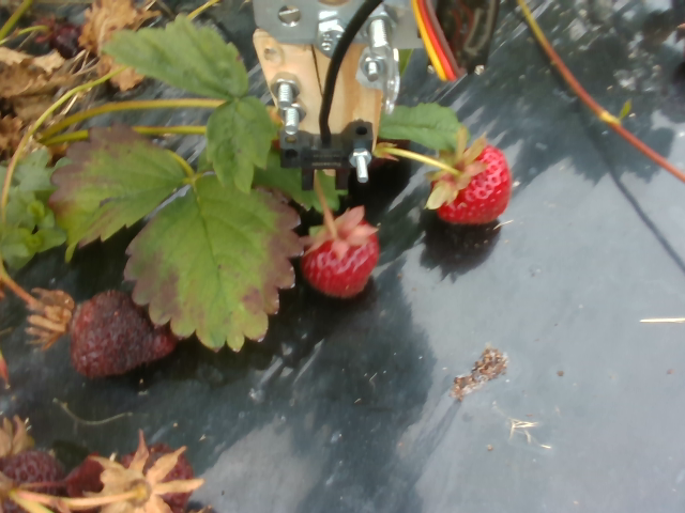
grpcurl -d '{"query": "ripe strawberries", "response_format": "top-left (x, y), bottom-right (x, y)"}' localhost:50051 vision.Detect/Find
top-left (417, 140), bottom-right (524, 227)
top-left (298, 209), bottom-right (391, 309)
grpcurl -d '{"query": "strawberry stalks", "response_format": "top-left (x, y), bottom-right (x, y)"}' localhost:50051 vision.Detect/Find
top-left (413, 142), bottom-right (473, 183)
top-left (311, 189), bottom-right (344, 241)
